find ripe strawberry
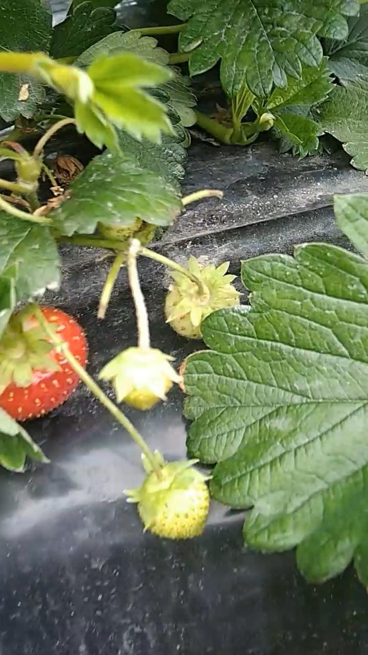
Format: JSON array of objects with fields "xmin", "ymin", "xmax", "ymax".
[{"xmin": 0, "ymin": 304, "xmax": 93, "ymax": 427}]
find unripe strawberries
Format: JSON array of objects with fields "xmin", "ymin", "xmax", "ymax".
[
  {"xmin": 116, "ymin": 354, "xmax": 174, "ymax": 409},
  {"xmin": 139, "ymin": 464, "xmax": 218, "ymax": 541},
  {"xmin": 164, "ymin": 269, "xmax": 239, "ymax": 342}
]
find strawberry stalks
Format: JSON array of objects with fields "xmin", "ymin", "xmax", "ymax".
[
  {"xmin": 122, "ymin": 293, "xmax": 164, "ymax": 368},
  {"xmin": 132, "ymin": 424, "xmax": 166, "ymax": 486},
  {"xmin": 0, "ymin": 279, "xmax": 35, "ymax": 360},
  {"xmin": 180, "ymin": 251, "xmax": 212, "ymax": 309}
]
